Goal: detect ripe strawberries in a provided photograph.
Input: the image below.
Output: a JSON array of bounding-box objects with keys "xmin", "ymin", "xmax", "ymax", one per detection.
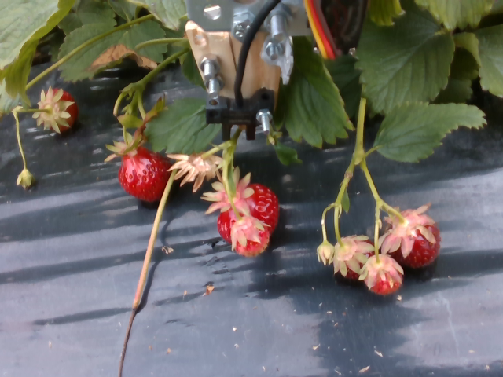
[
  {"xmin": 118, "ymin": 144, "xmax": 166, "ymax": 203},
  {"xmin": 386, "ymin": 218, "xmax": 440, "ymax": 262},
  {"xmin": 334, "ymin": 240, "xmax": 374, "ymax": 280},
  {"xmin": 371, "ymin": 256, "xmax": 404, "ymax": 293},
  {"xmin": 220, "ymin": 182, "xmax": 280, "ymax": 244},
  {"xmin": 38, "ymin": 90, "xmax": 81, "ymax": 134},
  {"xmin": 232, "ymin": 214, "xmax": 266, "ymax": 252}
]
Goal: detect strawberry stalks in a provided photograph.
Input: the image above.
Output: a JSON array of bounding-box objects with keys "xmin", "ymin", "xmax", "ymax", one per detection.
[
  {"xmin": 377, "ymin": 197, "xmax": 411, "ymax": 229},
  {"xmin": 121, "ymin": 104, "xmax": 135, "ymax": 156},
  {"xmin": 331, "ymin": 205, "xmax": 350, "ymax": 252},
  {"xmin": 12, "ymin": 107, "xmax": 35, "ymax": 190},
  {"xmin": 221, "ymin": 145, "xmax": 245, "ymax": 199},
  {"xmin": 8, "ymin": 102, "xmax": 56, "ymax": 119},
  {"xmin": 371, "ymin": 202, "xmax": 385, "ymax": 269},
  {"xmin": 223, "ymin": 147, "xmax": 250, "ymax": 225}
]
